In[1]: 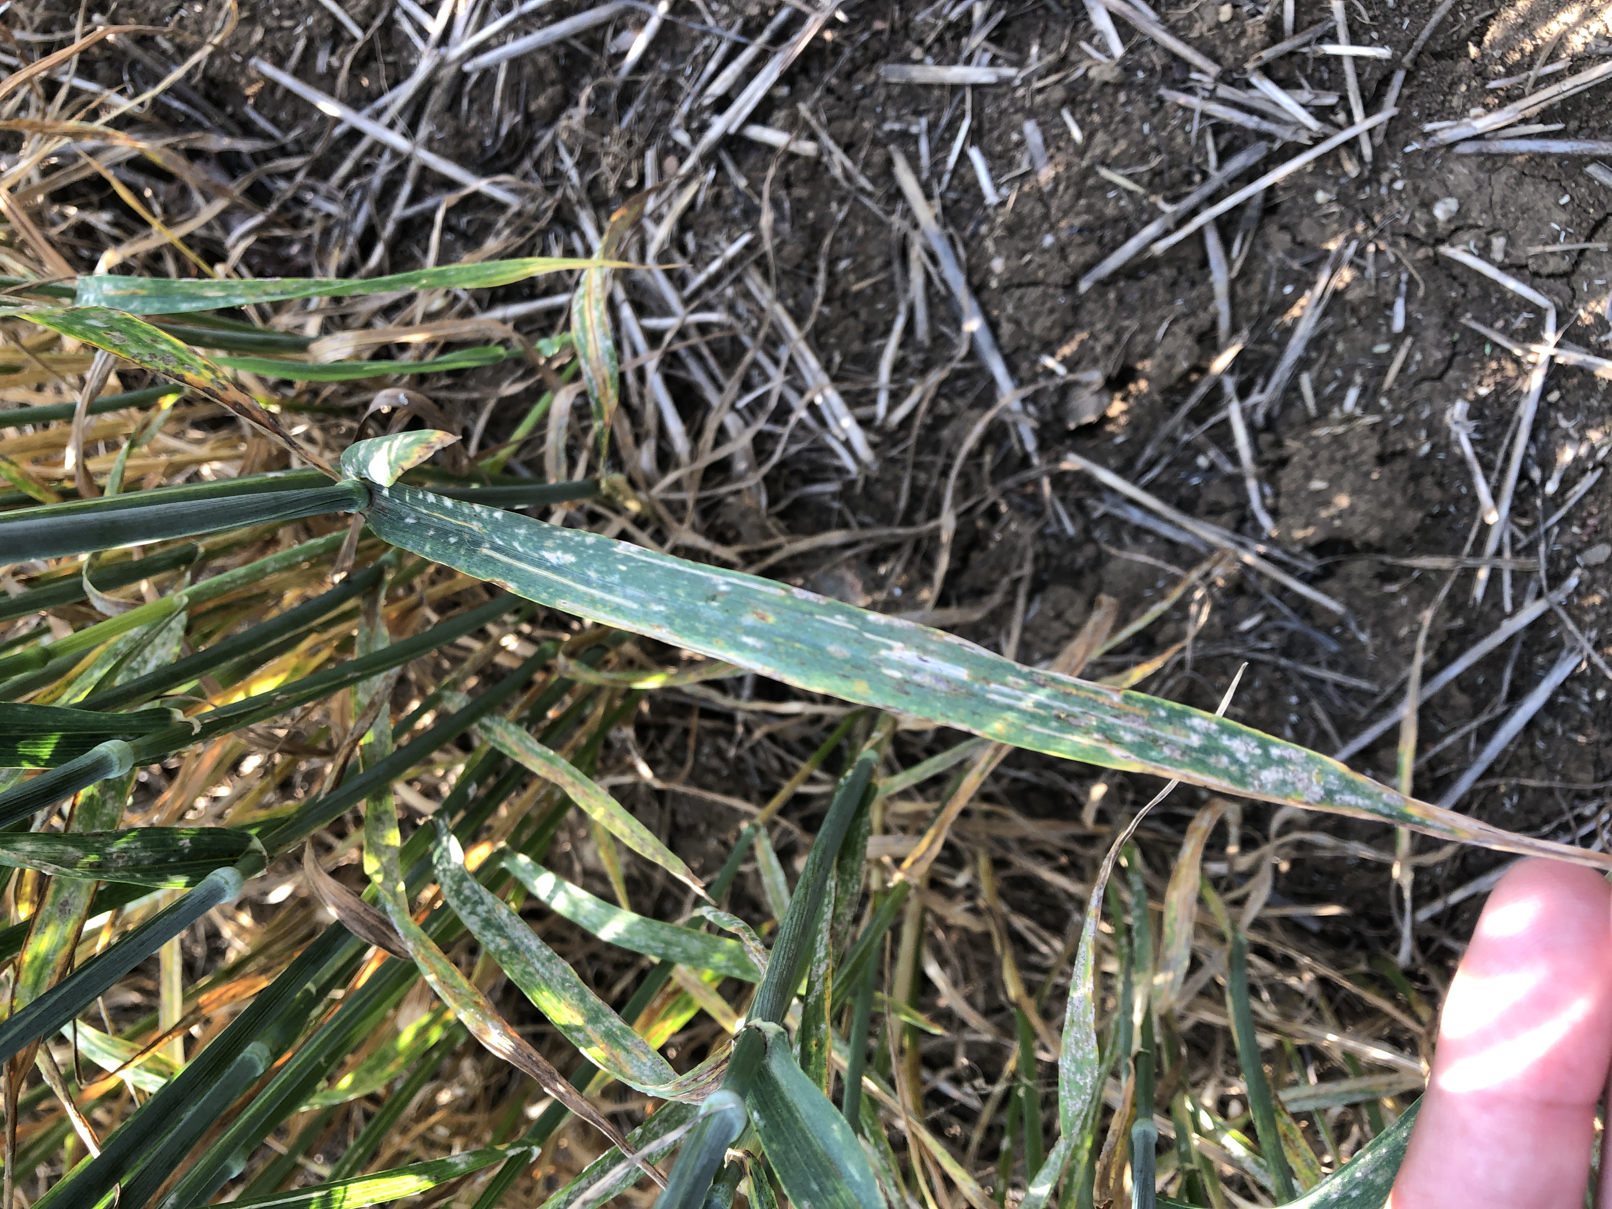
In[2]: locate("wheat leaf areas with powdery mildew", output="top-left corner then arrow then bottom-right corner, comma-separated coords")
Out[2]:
381,898 -> 549,1120
414,794 -> 660,1093
516,789 -> 769,980
83,581 -> 196,729
372,452 -> 1405,907
65,232 -> 292,329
